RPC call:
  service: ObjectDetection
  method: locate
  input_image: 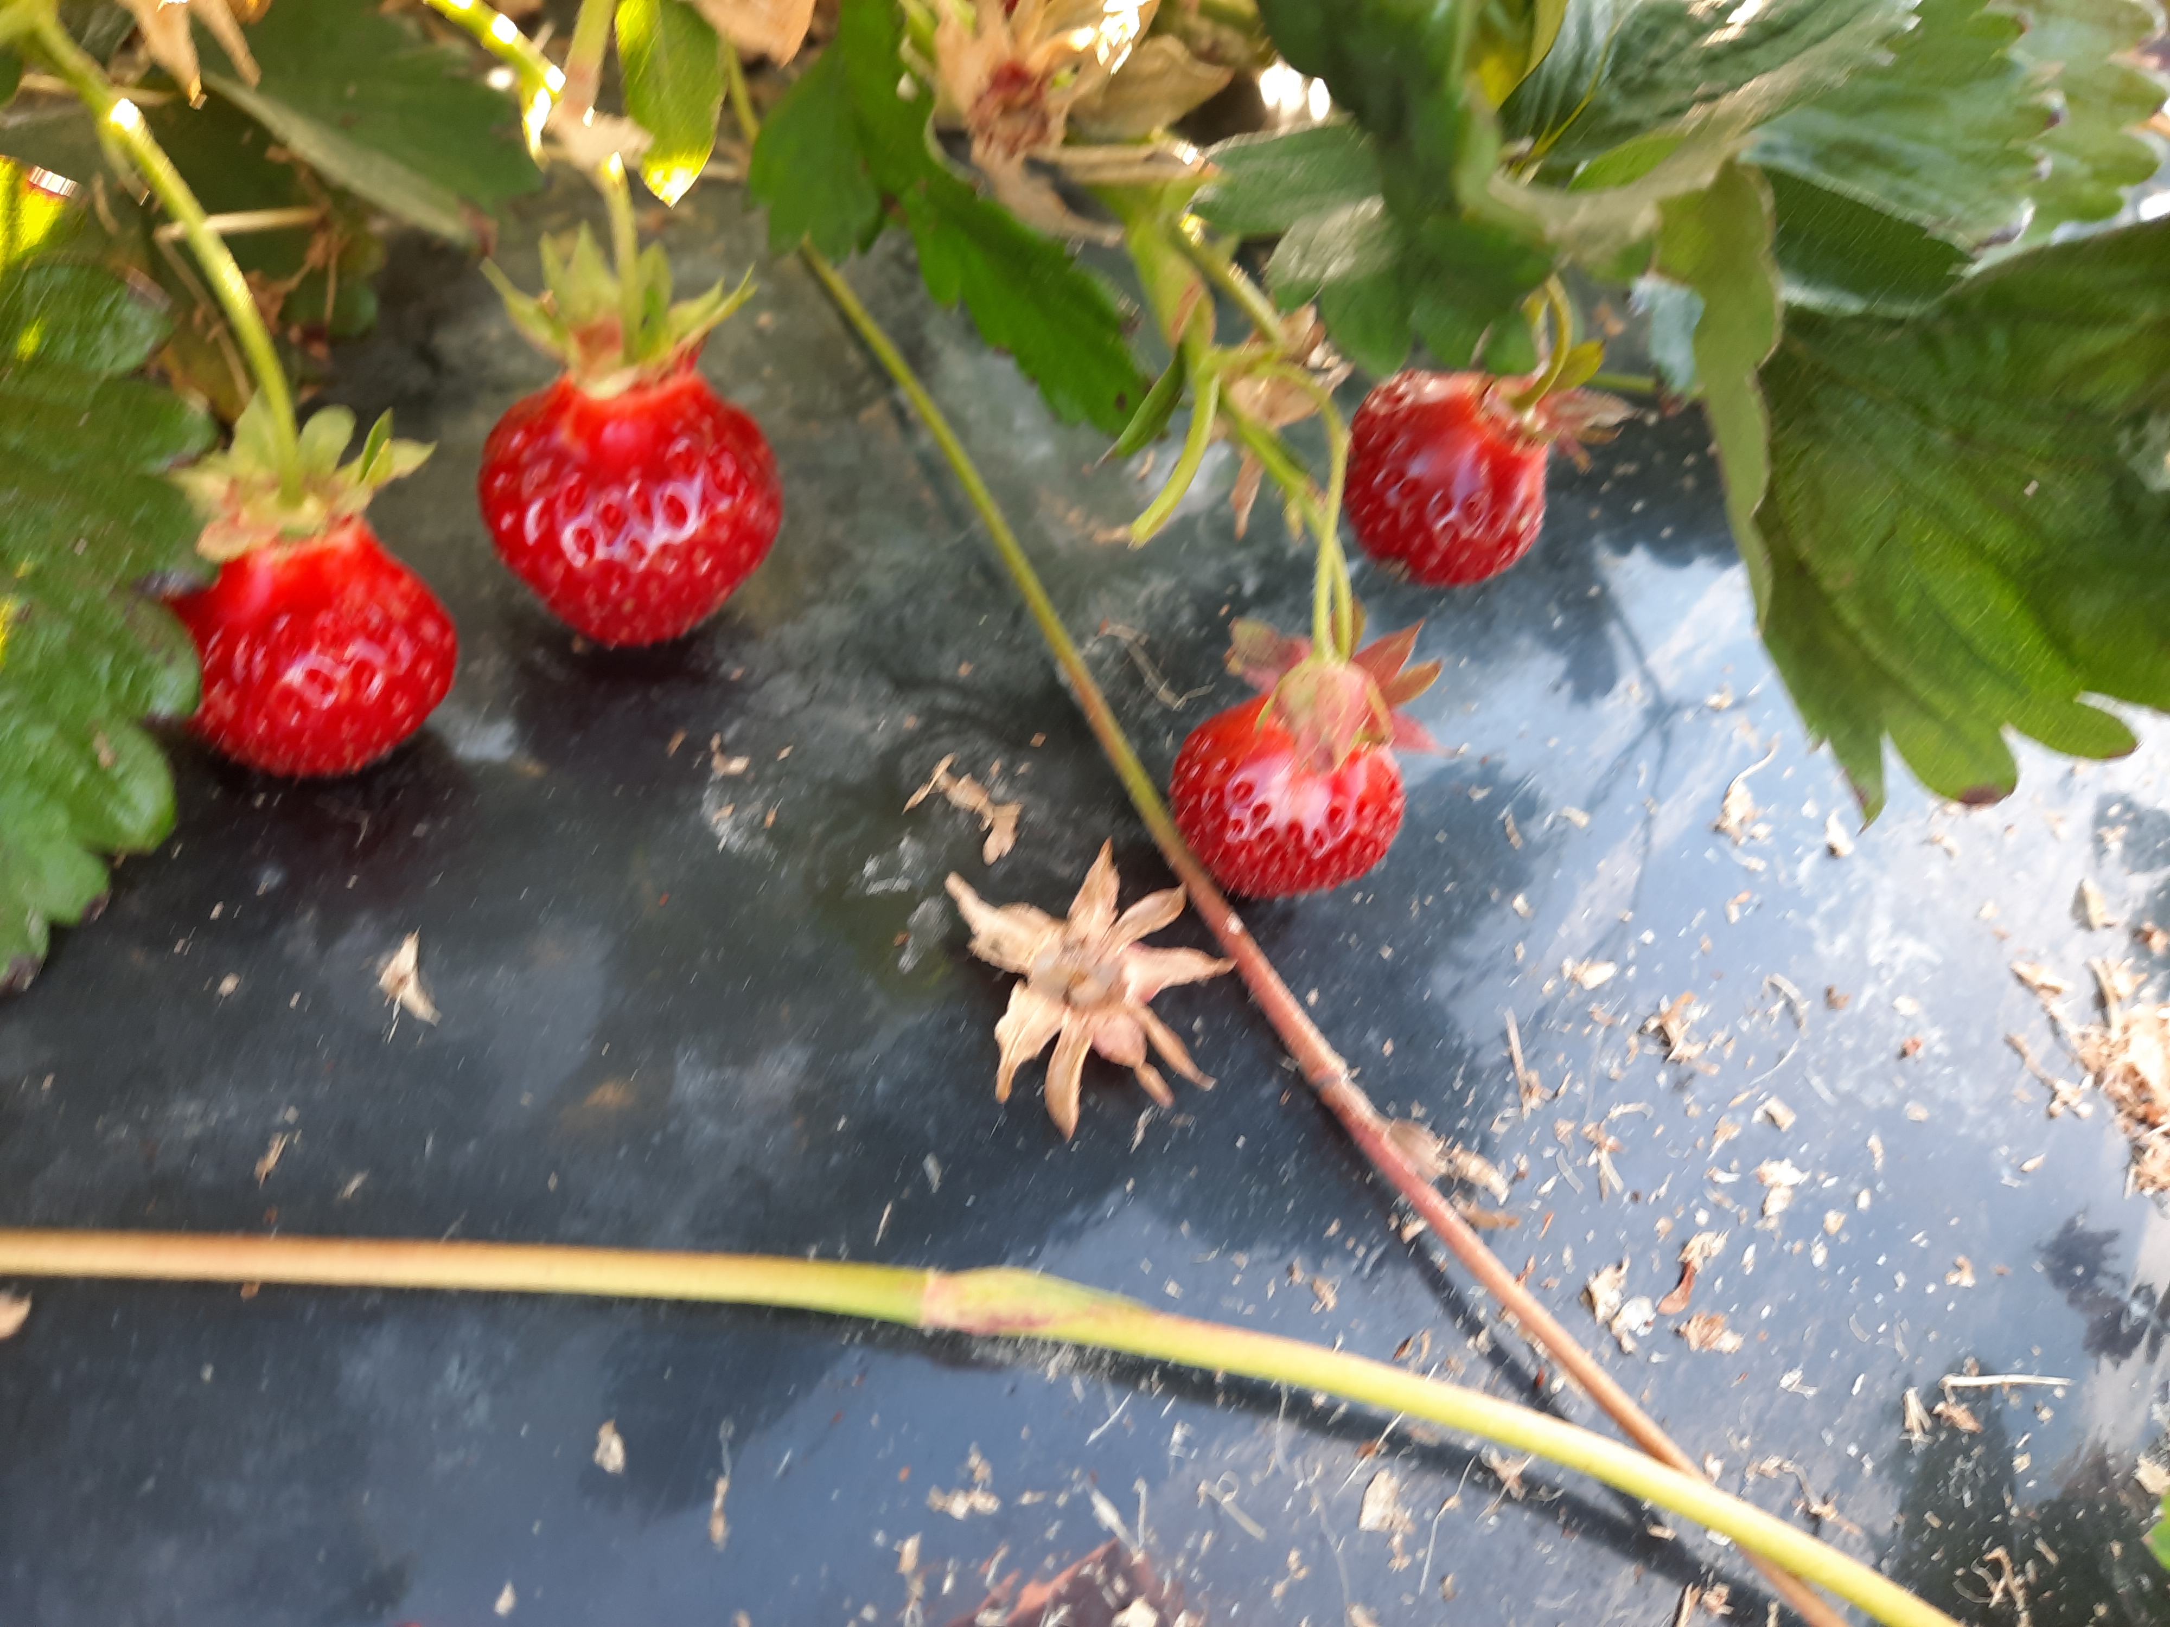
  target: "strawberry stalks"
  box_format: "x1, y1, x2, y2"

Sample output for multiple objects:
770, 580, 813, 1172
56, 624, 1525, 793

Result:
591, 160, 653, 456
1483, 274, 1591, 462
1289, 518, 1359, 782
177, 210, 331, 584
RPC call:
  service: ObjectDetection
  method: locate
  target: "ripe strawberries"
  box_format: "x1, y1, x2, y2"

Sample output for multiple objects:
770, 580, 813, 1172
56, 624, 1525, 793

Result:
493, 366, 795, 640
145, 522, 447, 766
1191, 706, 1393, 903
1351, 386, 1581, 572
